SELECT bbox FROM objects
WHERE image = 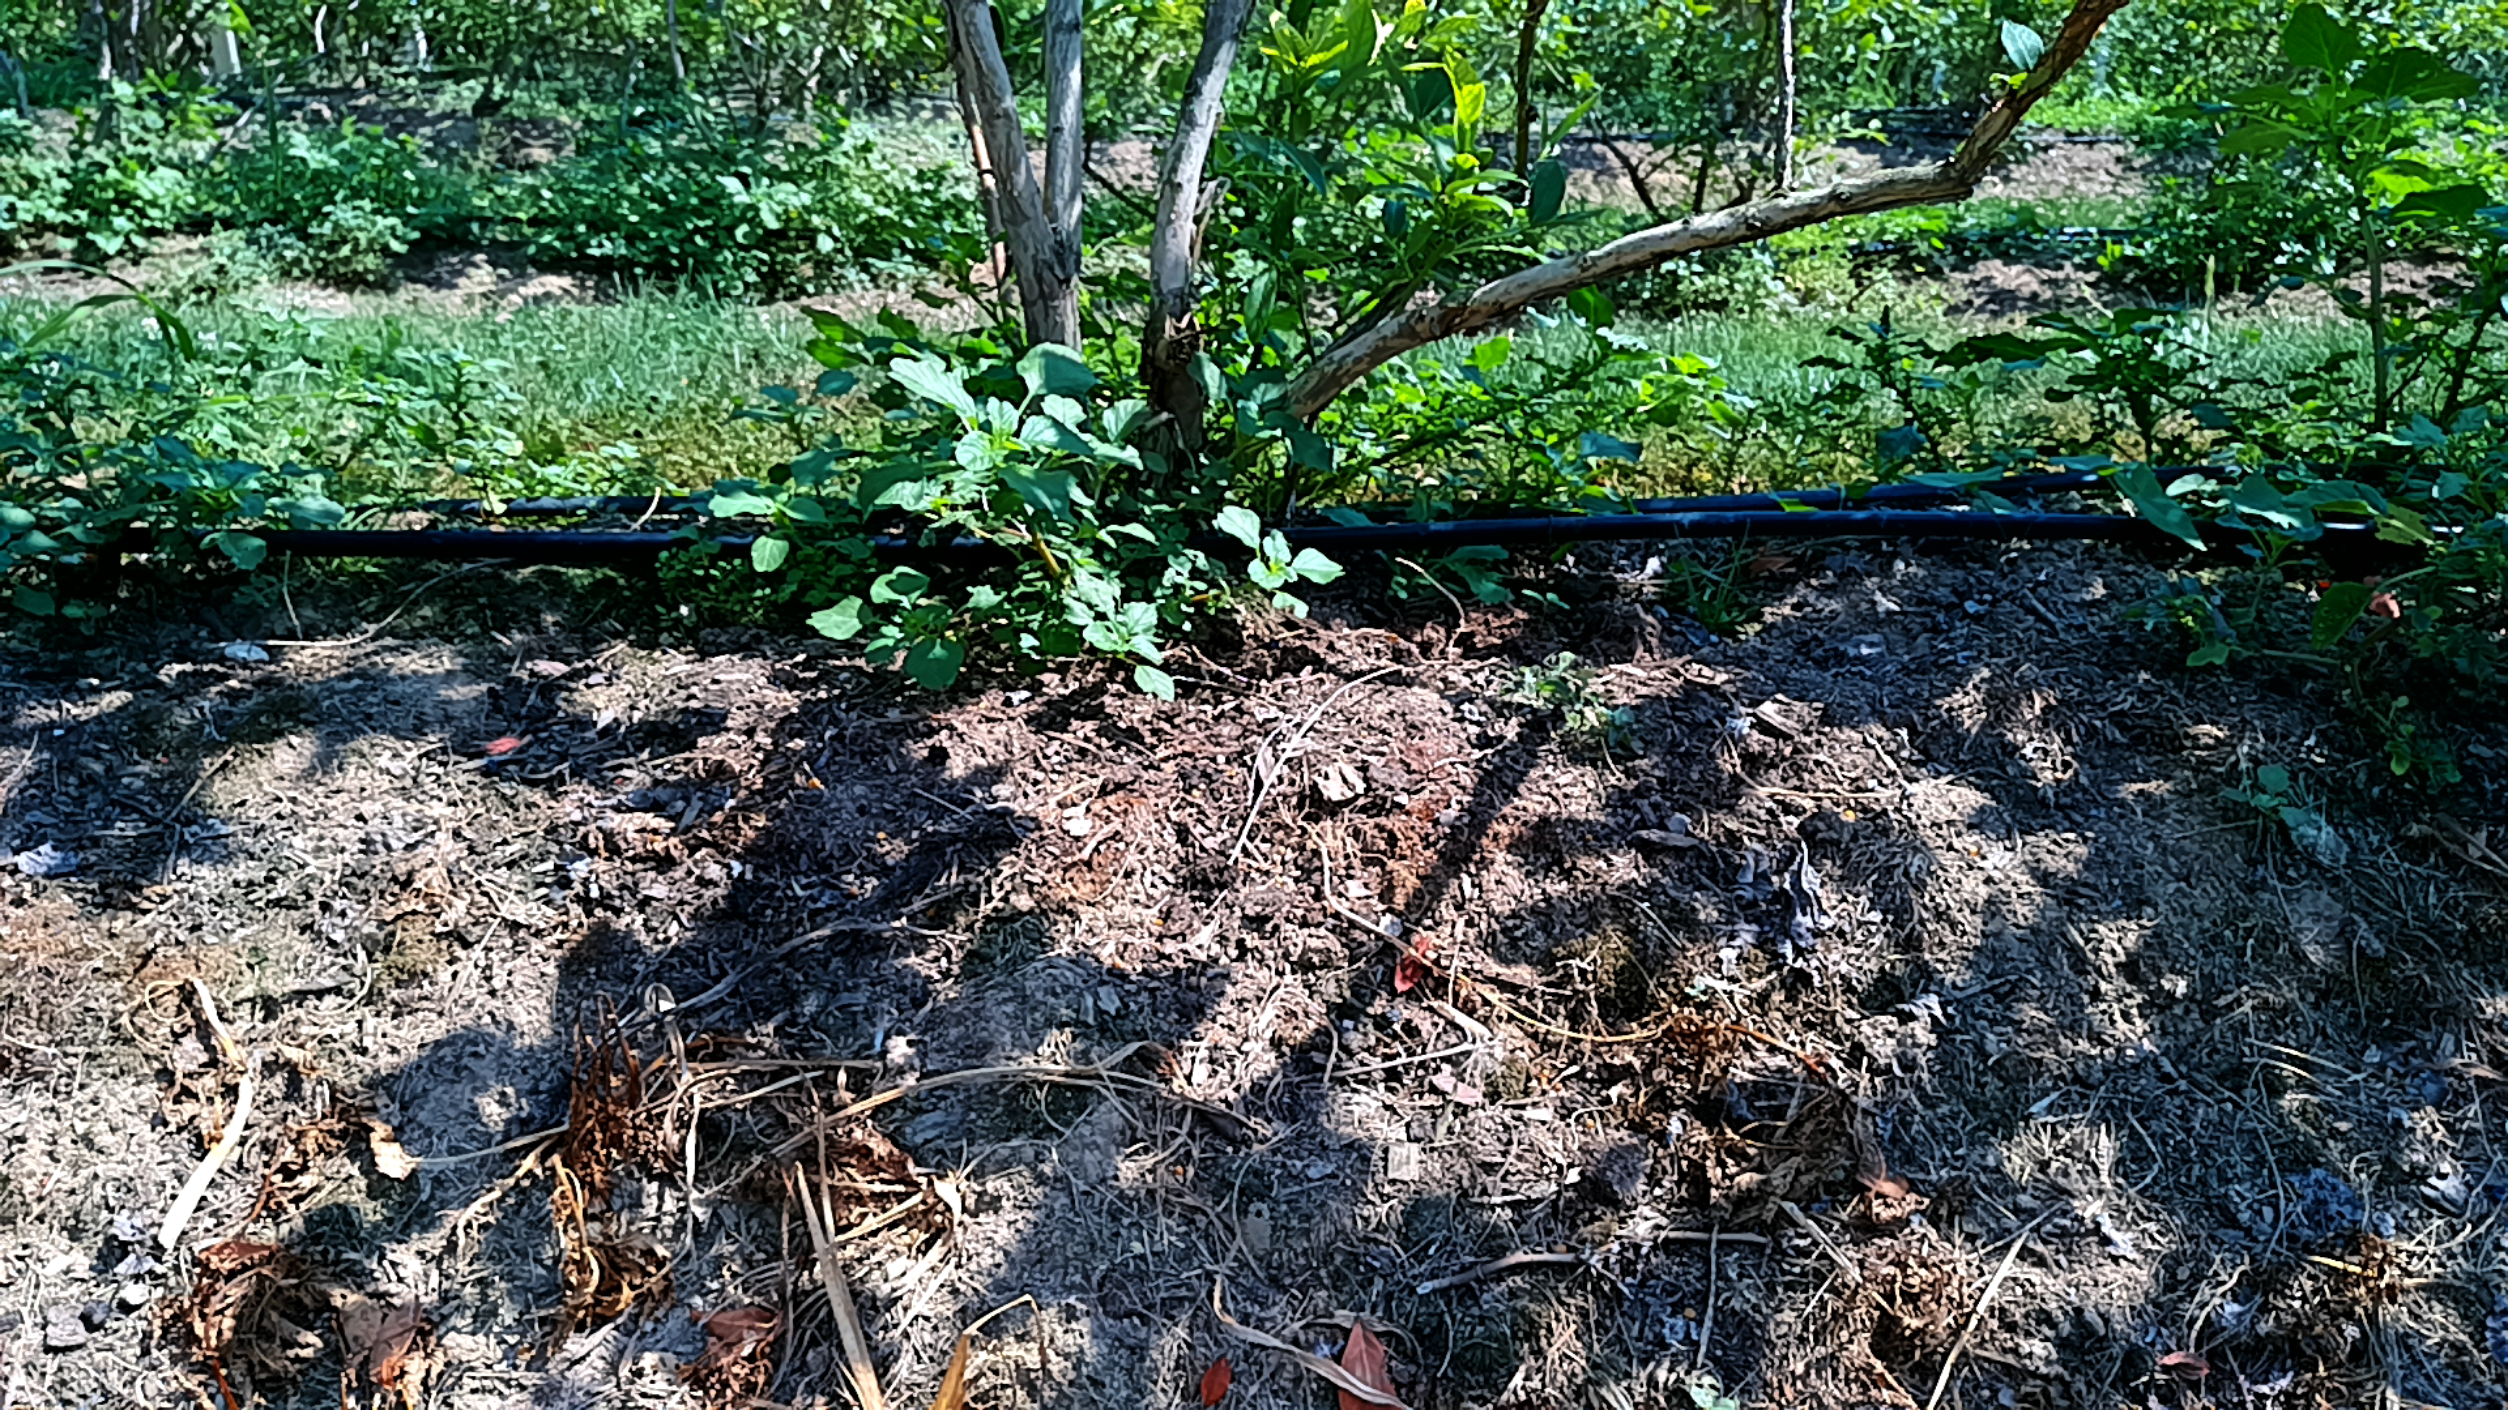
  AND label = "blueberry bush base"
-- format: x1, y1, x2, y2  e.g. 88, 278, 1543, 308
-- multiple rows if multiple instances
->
879, 194, 1442, 685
